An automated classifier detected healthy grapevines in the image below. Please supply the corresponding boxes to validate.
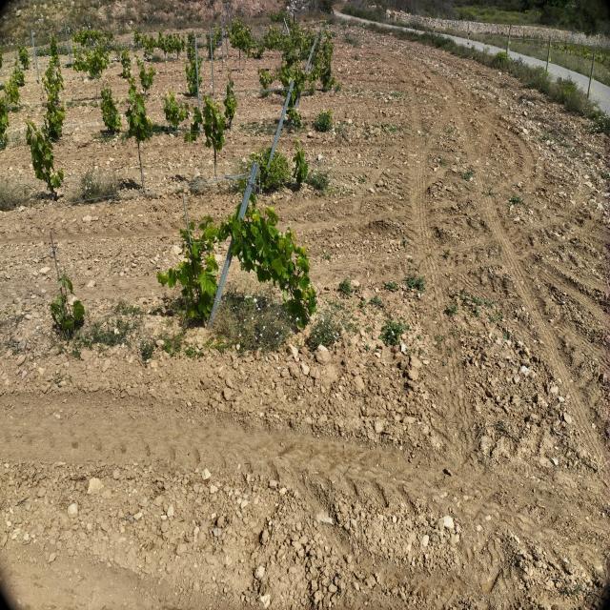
[46,269,87,343]
[152,193,321,335]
